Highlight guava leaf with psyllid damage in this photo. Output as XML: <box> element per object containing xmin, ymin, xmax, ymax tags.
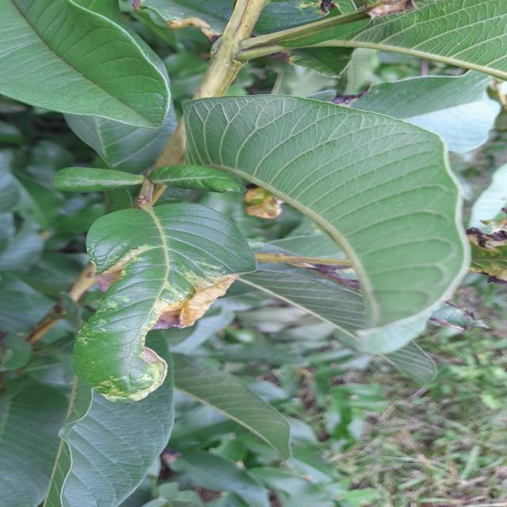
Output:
<box><xmin>51</xmin><ymin>202</ymin><xmax>260</xmax><ymax>425</ymax></box>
